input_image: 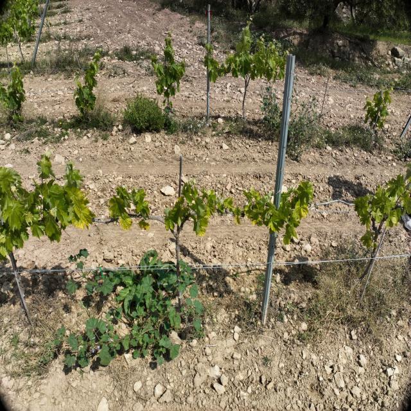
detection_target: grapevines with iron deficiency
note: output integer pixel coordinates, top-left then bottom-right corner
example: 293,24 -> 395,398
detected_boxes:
105,175 -> 316,322
0,148 -> 96,331
351,164 -> 411,284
